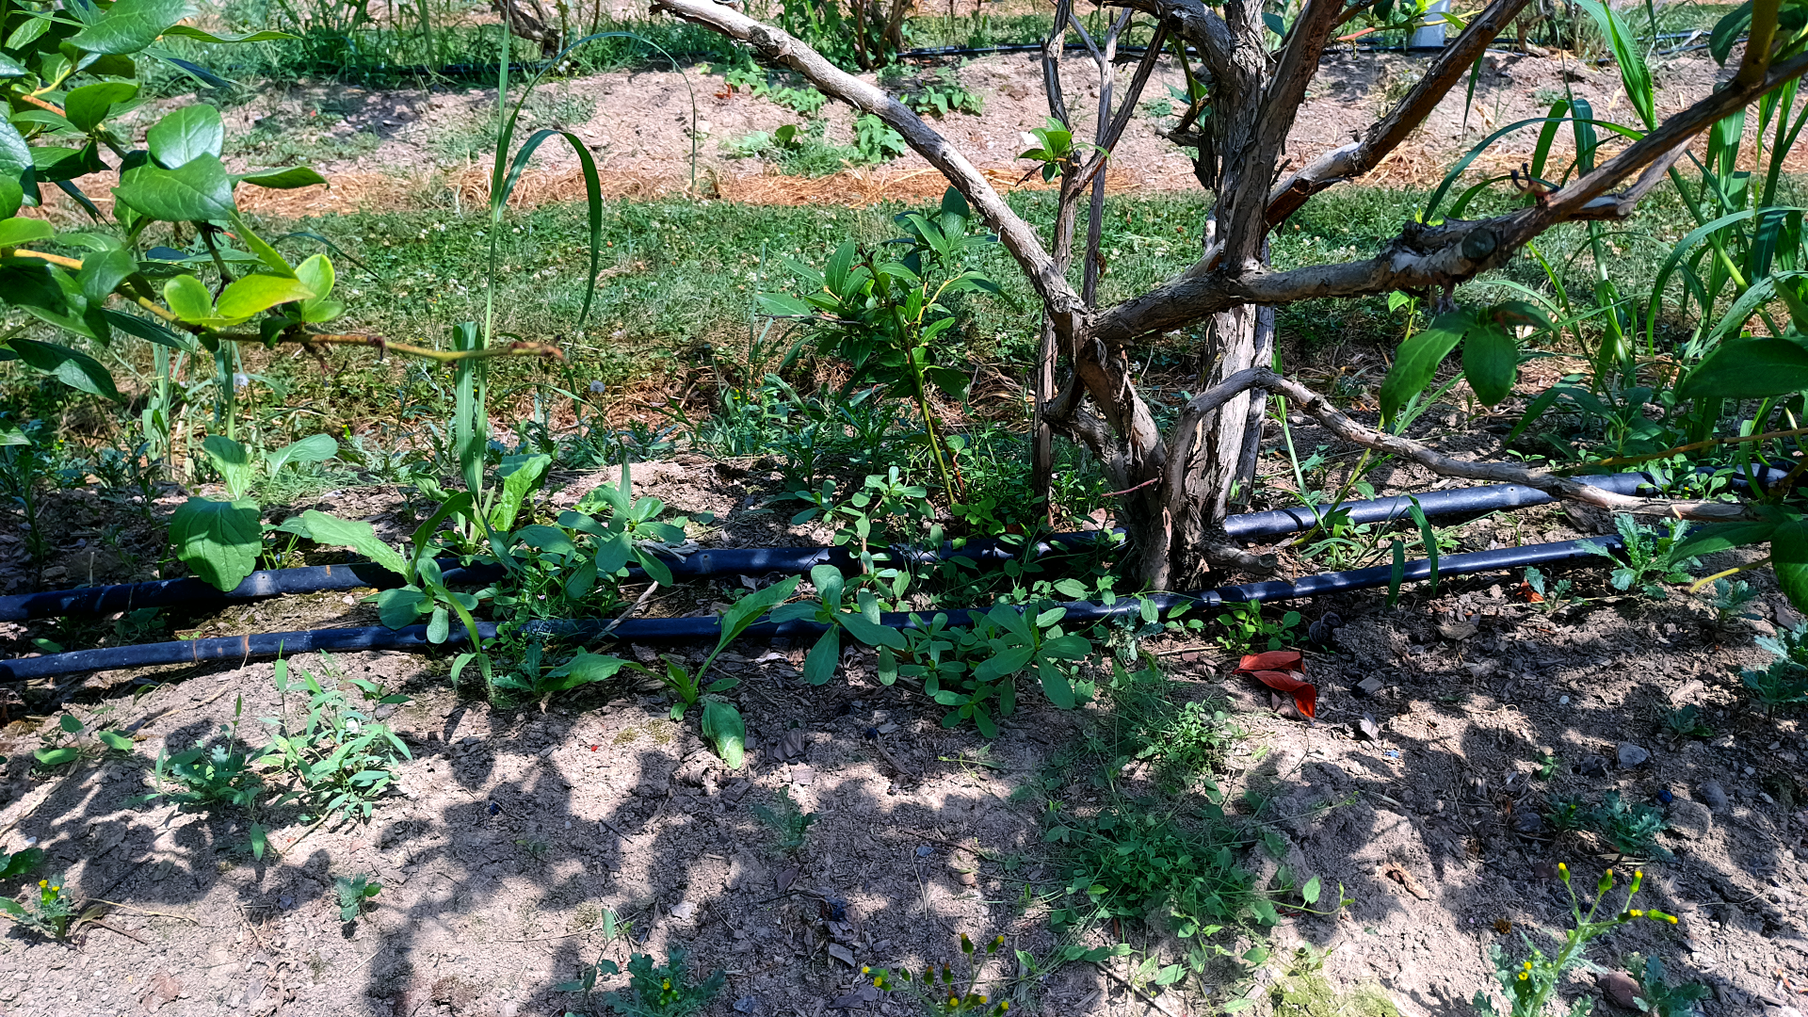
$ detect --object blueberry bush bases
[931,276,1390,690]
[498,7,617,76]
